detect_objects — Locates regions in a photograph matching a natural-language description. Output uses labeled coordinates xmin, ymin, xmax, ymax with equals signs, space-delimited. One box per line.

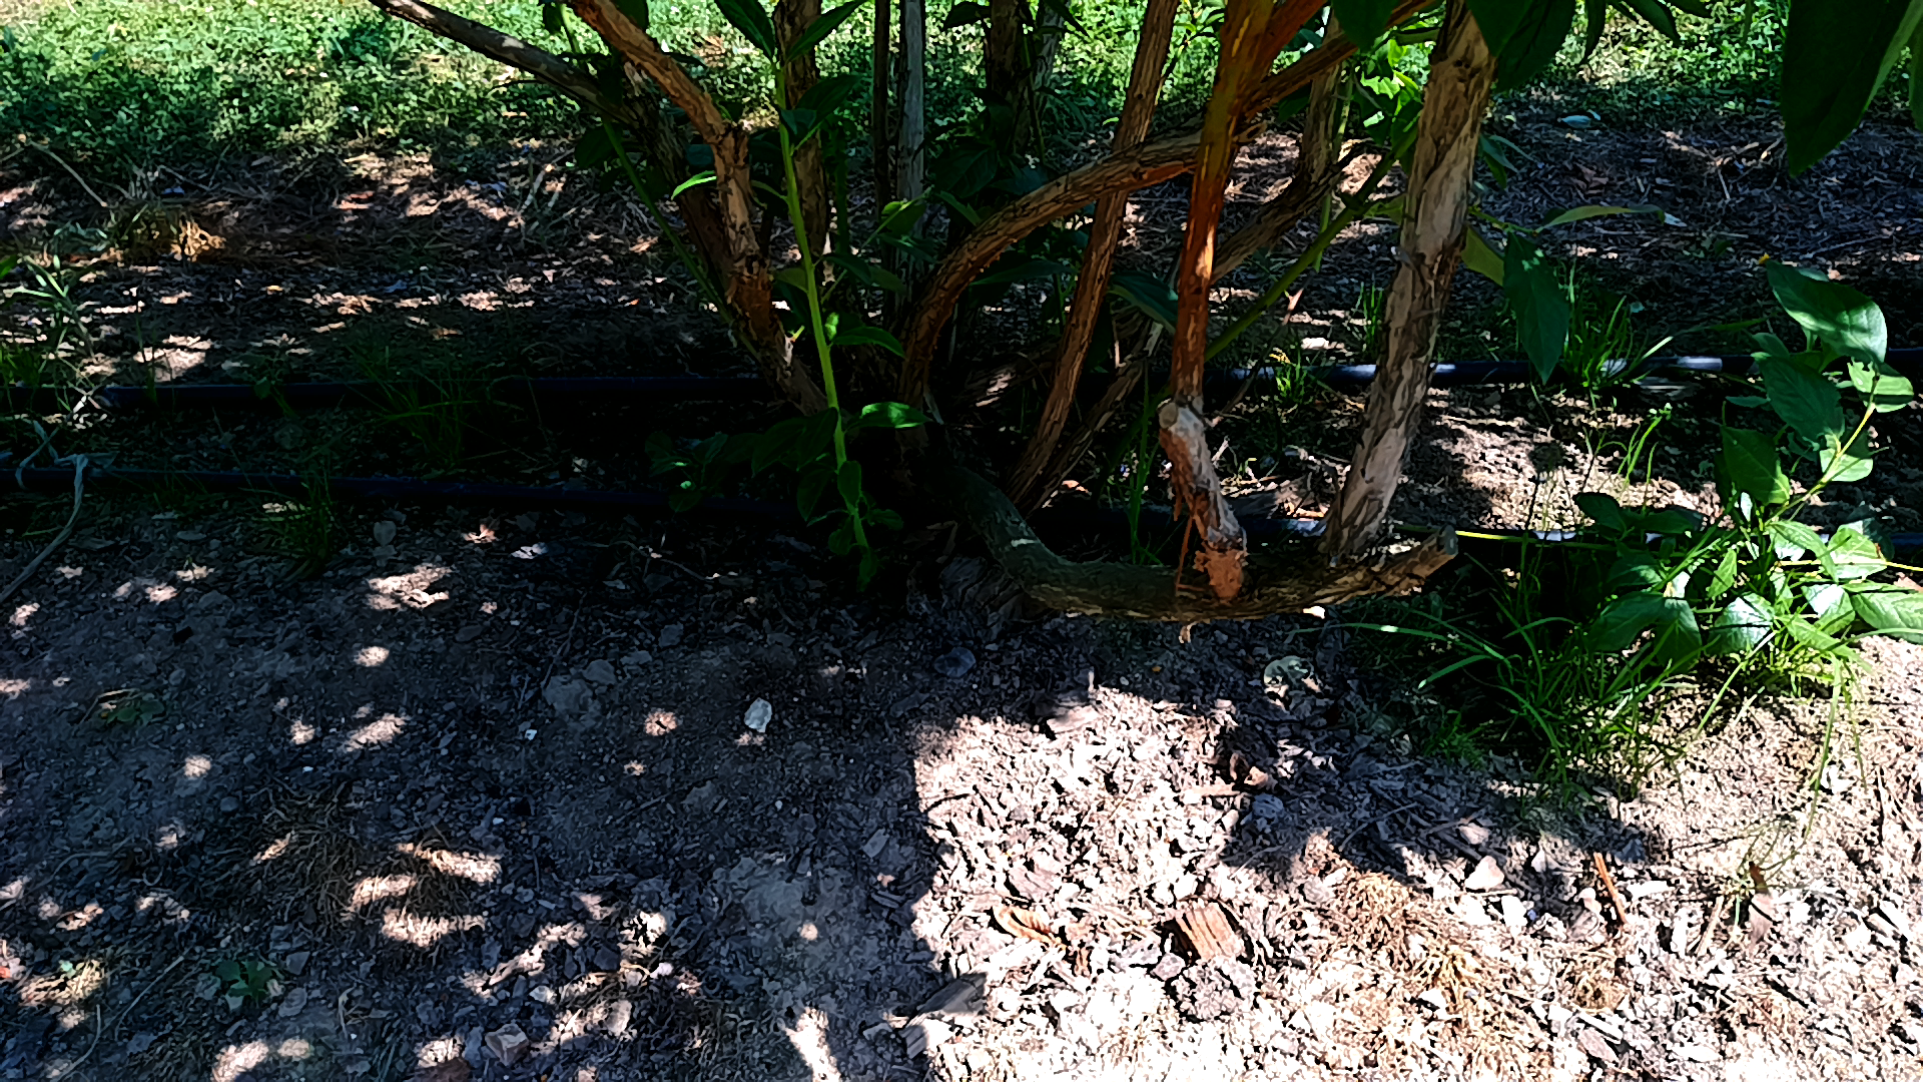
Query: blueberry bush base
xmin=588 ymin=123 xmax=1478 ymax=740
